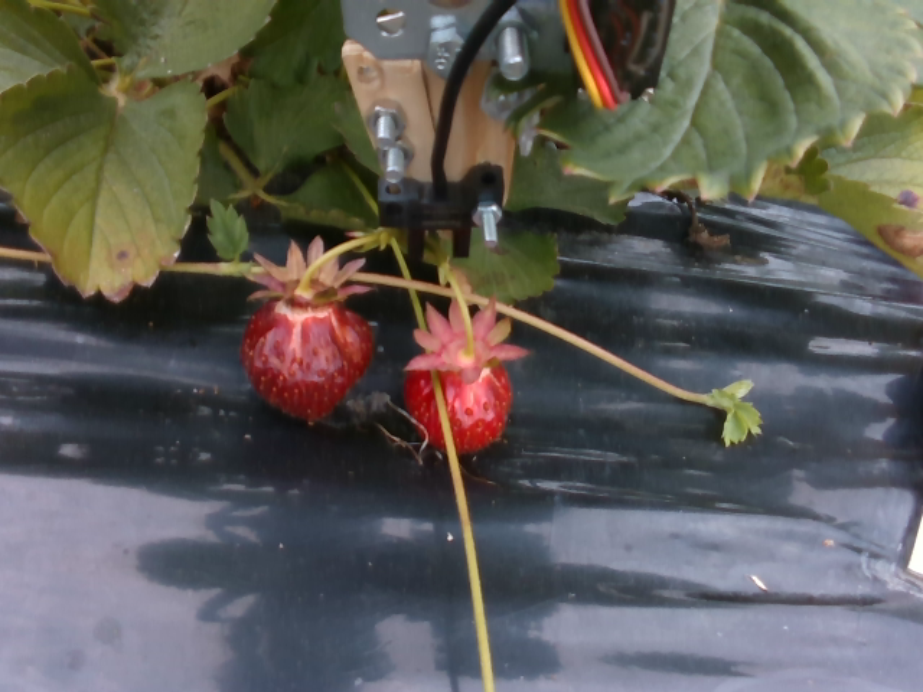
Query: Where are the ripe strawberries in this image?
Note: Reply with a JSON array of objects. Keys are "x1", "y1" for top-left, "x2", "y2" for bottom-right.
[
  {"x1": 243, "y1": 303, "x2": 375, "y2": 423},
  {"x1": 409, "y1": 343, "x2": 511, "y2": 452}
]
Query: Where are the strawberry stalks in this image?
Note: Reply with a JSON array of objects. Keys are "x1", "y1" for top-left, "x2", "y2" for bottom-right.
[
  {"x1": 285, "y1": 225, "x2": 375, "y2": 324},
  {"x1": 437, "y1": 261, "x2": 495, "y2": 372}
]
